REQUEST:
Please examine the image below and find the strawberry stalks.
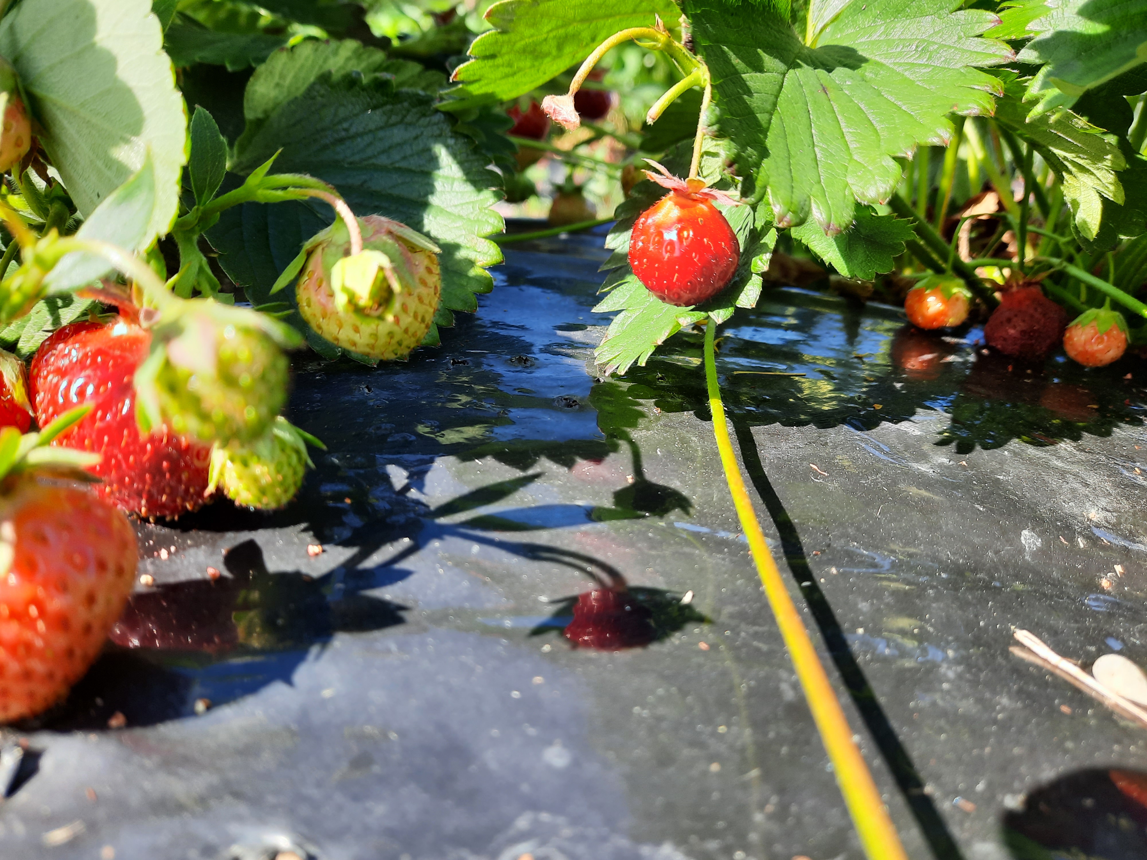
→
[684,76,725,210]
[940,219,967,282]
[1099,247,1123,312]
[66,270,156,326]
[294,186,360,263]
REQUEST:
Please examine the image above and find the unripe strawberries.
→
[1068,312,1125,357]
[910,278,974,333]
[210,417,290,516]
[152,318,275,433]
[292,216,449,345]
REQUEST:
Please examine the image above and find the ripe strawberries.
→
[640,194,721,305]
[24,323,238,513]
[0,446,145,710]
